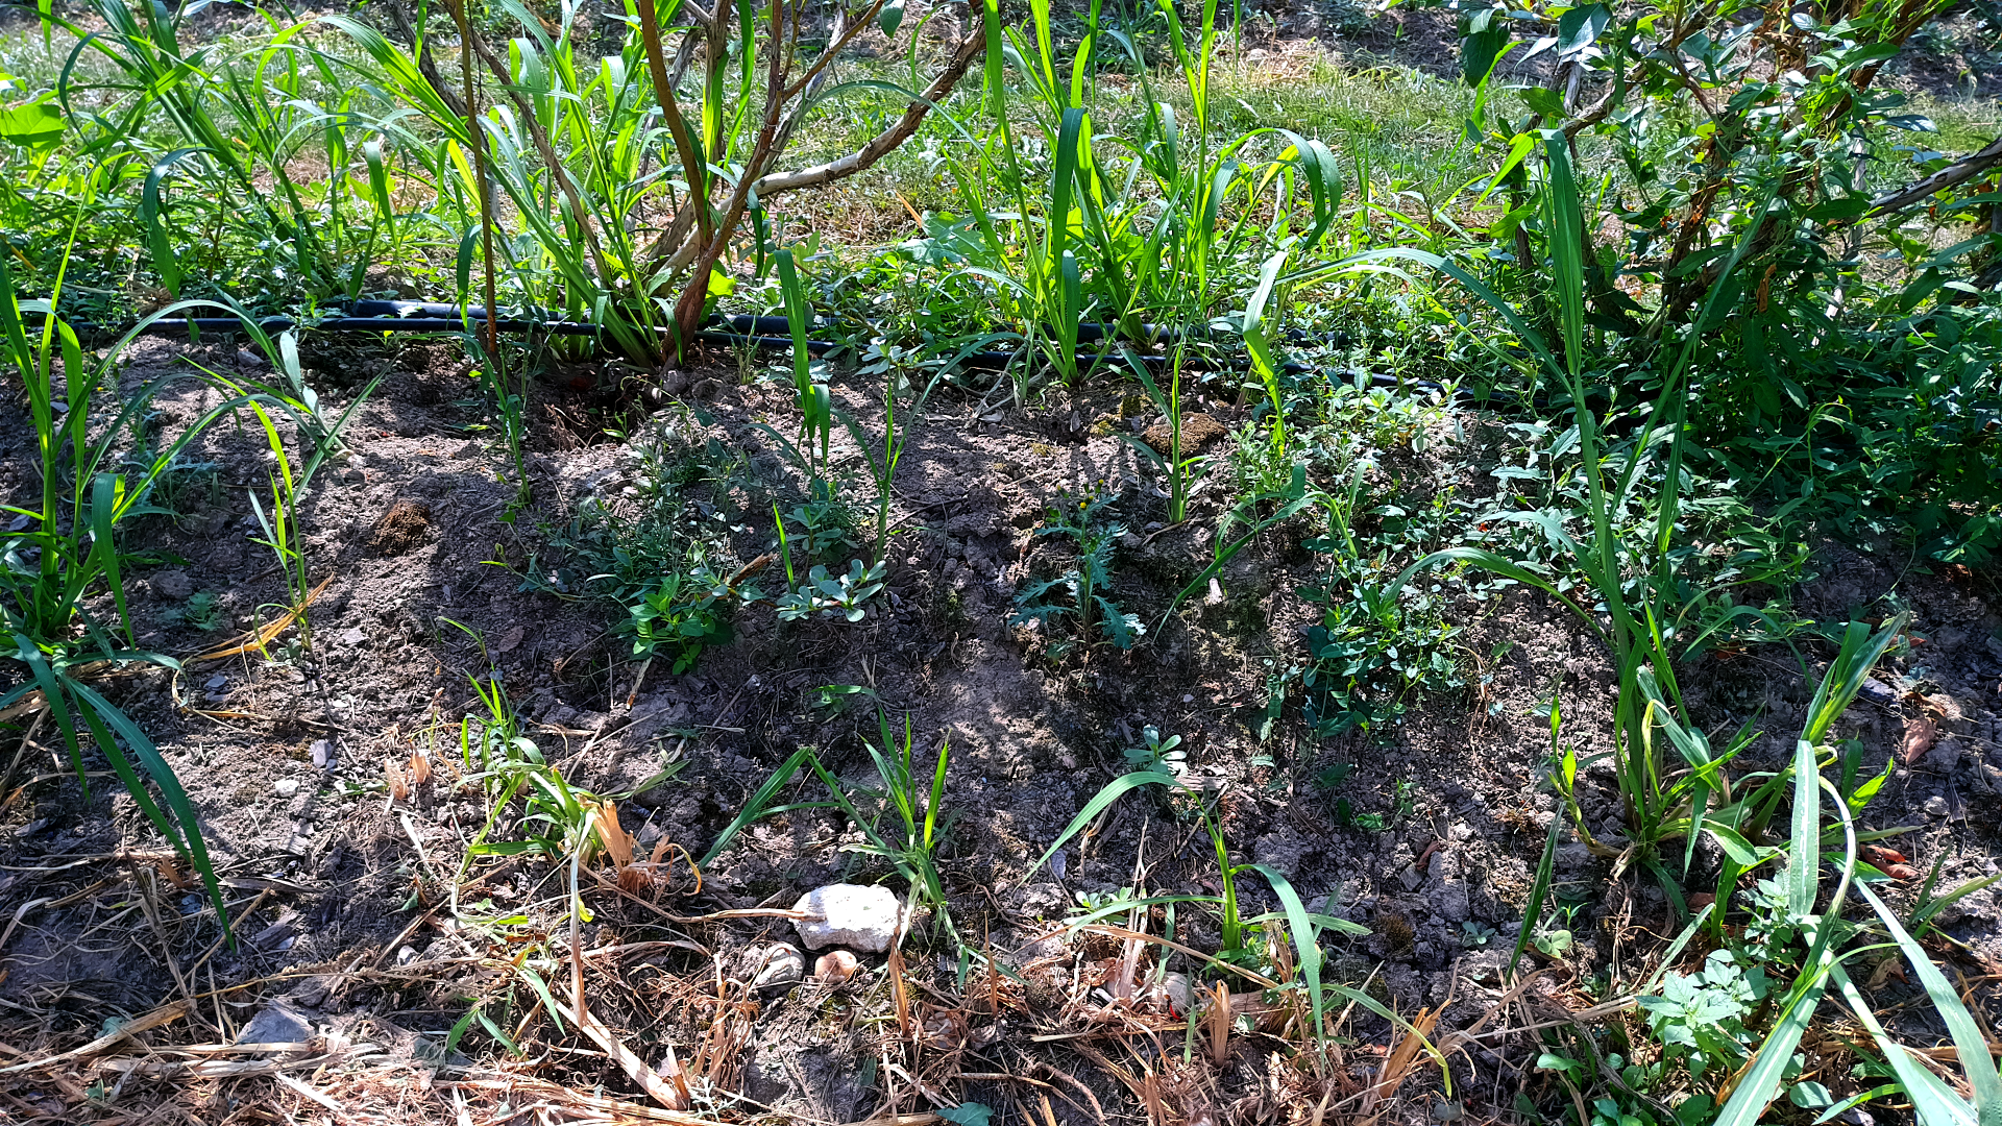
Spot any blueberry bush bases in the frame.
[1472,169,1893,508]
[436,174,802,485]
